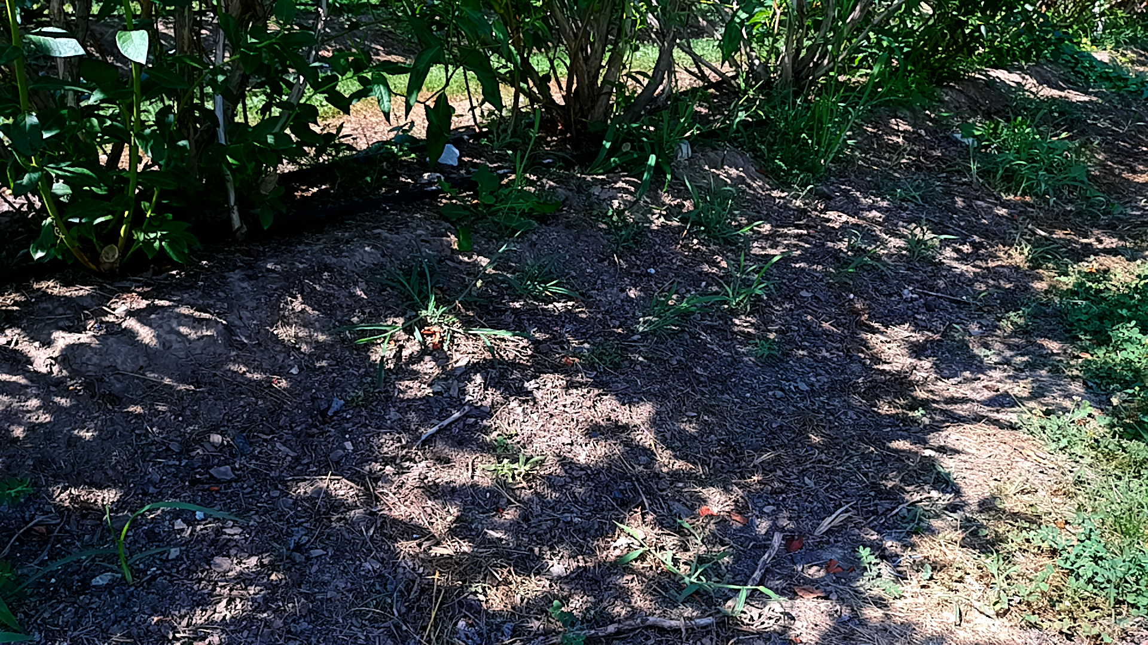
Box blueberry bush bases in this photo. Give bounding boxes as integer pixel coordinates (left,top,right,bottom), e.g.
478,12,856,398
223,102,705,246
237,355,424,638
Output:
484,28,674,219
12,62,309,358
697,23,871,181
